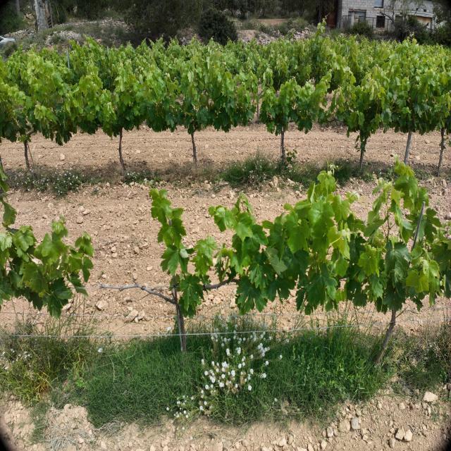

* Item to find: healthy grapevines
[102,176,301,370]
[0,198,97,357]
[298,151,451,386]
